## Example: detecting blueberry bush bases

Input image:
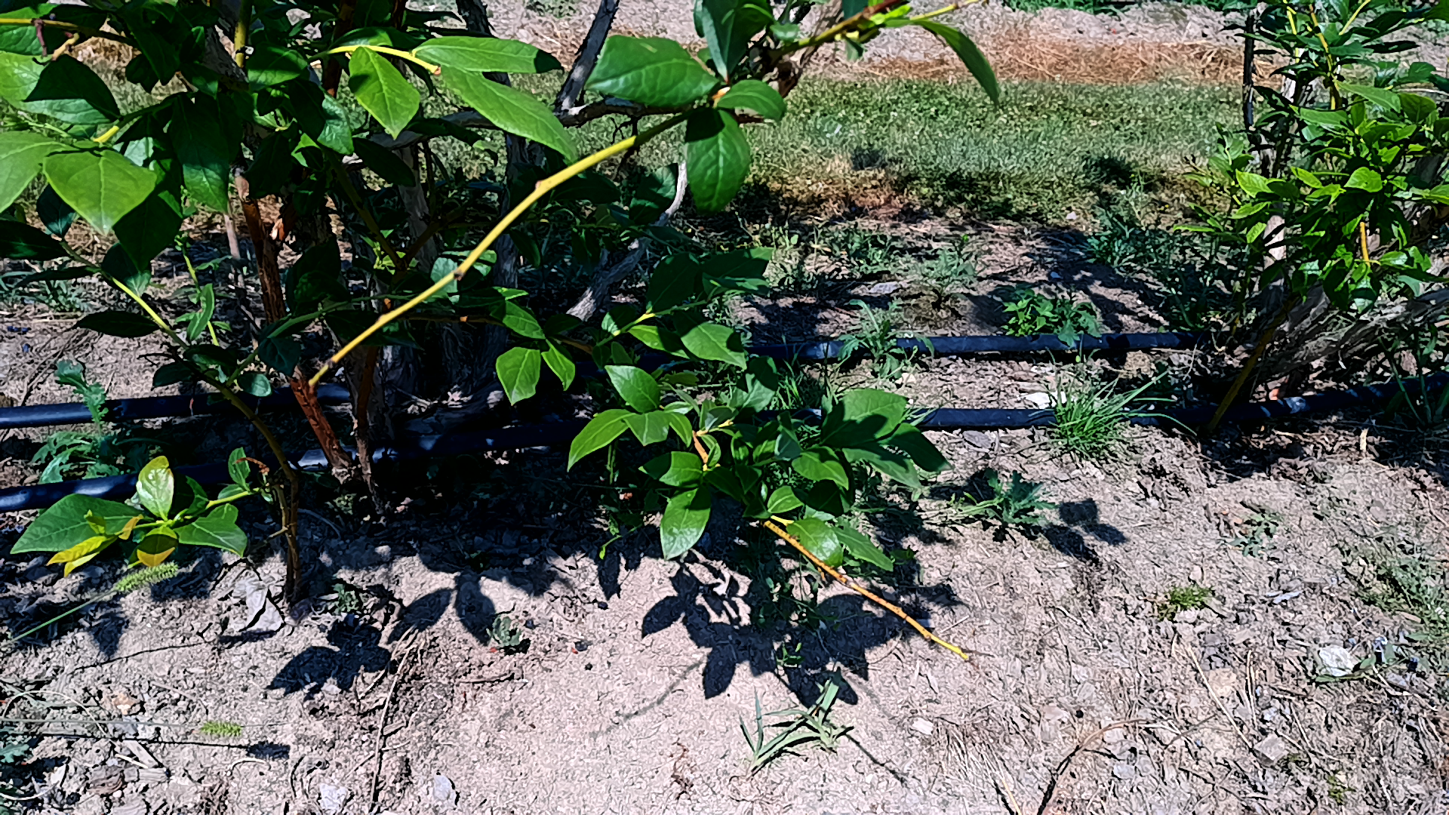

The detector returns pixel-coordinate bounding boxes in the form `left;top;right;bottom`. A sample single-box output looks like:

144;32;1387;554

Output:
127;159;712;640
1137;185;1448;547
